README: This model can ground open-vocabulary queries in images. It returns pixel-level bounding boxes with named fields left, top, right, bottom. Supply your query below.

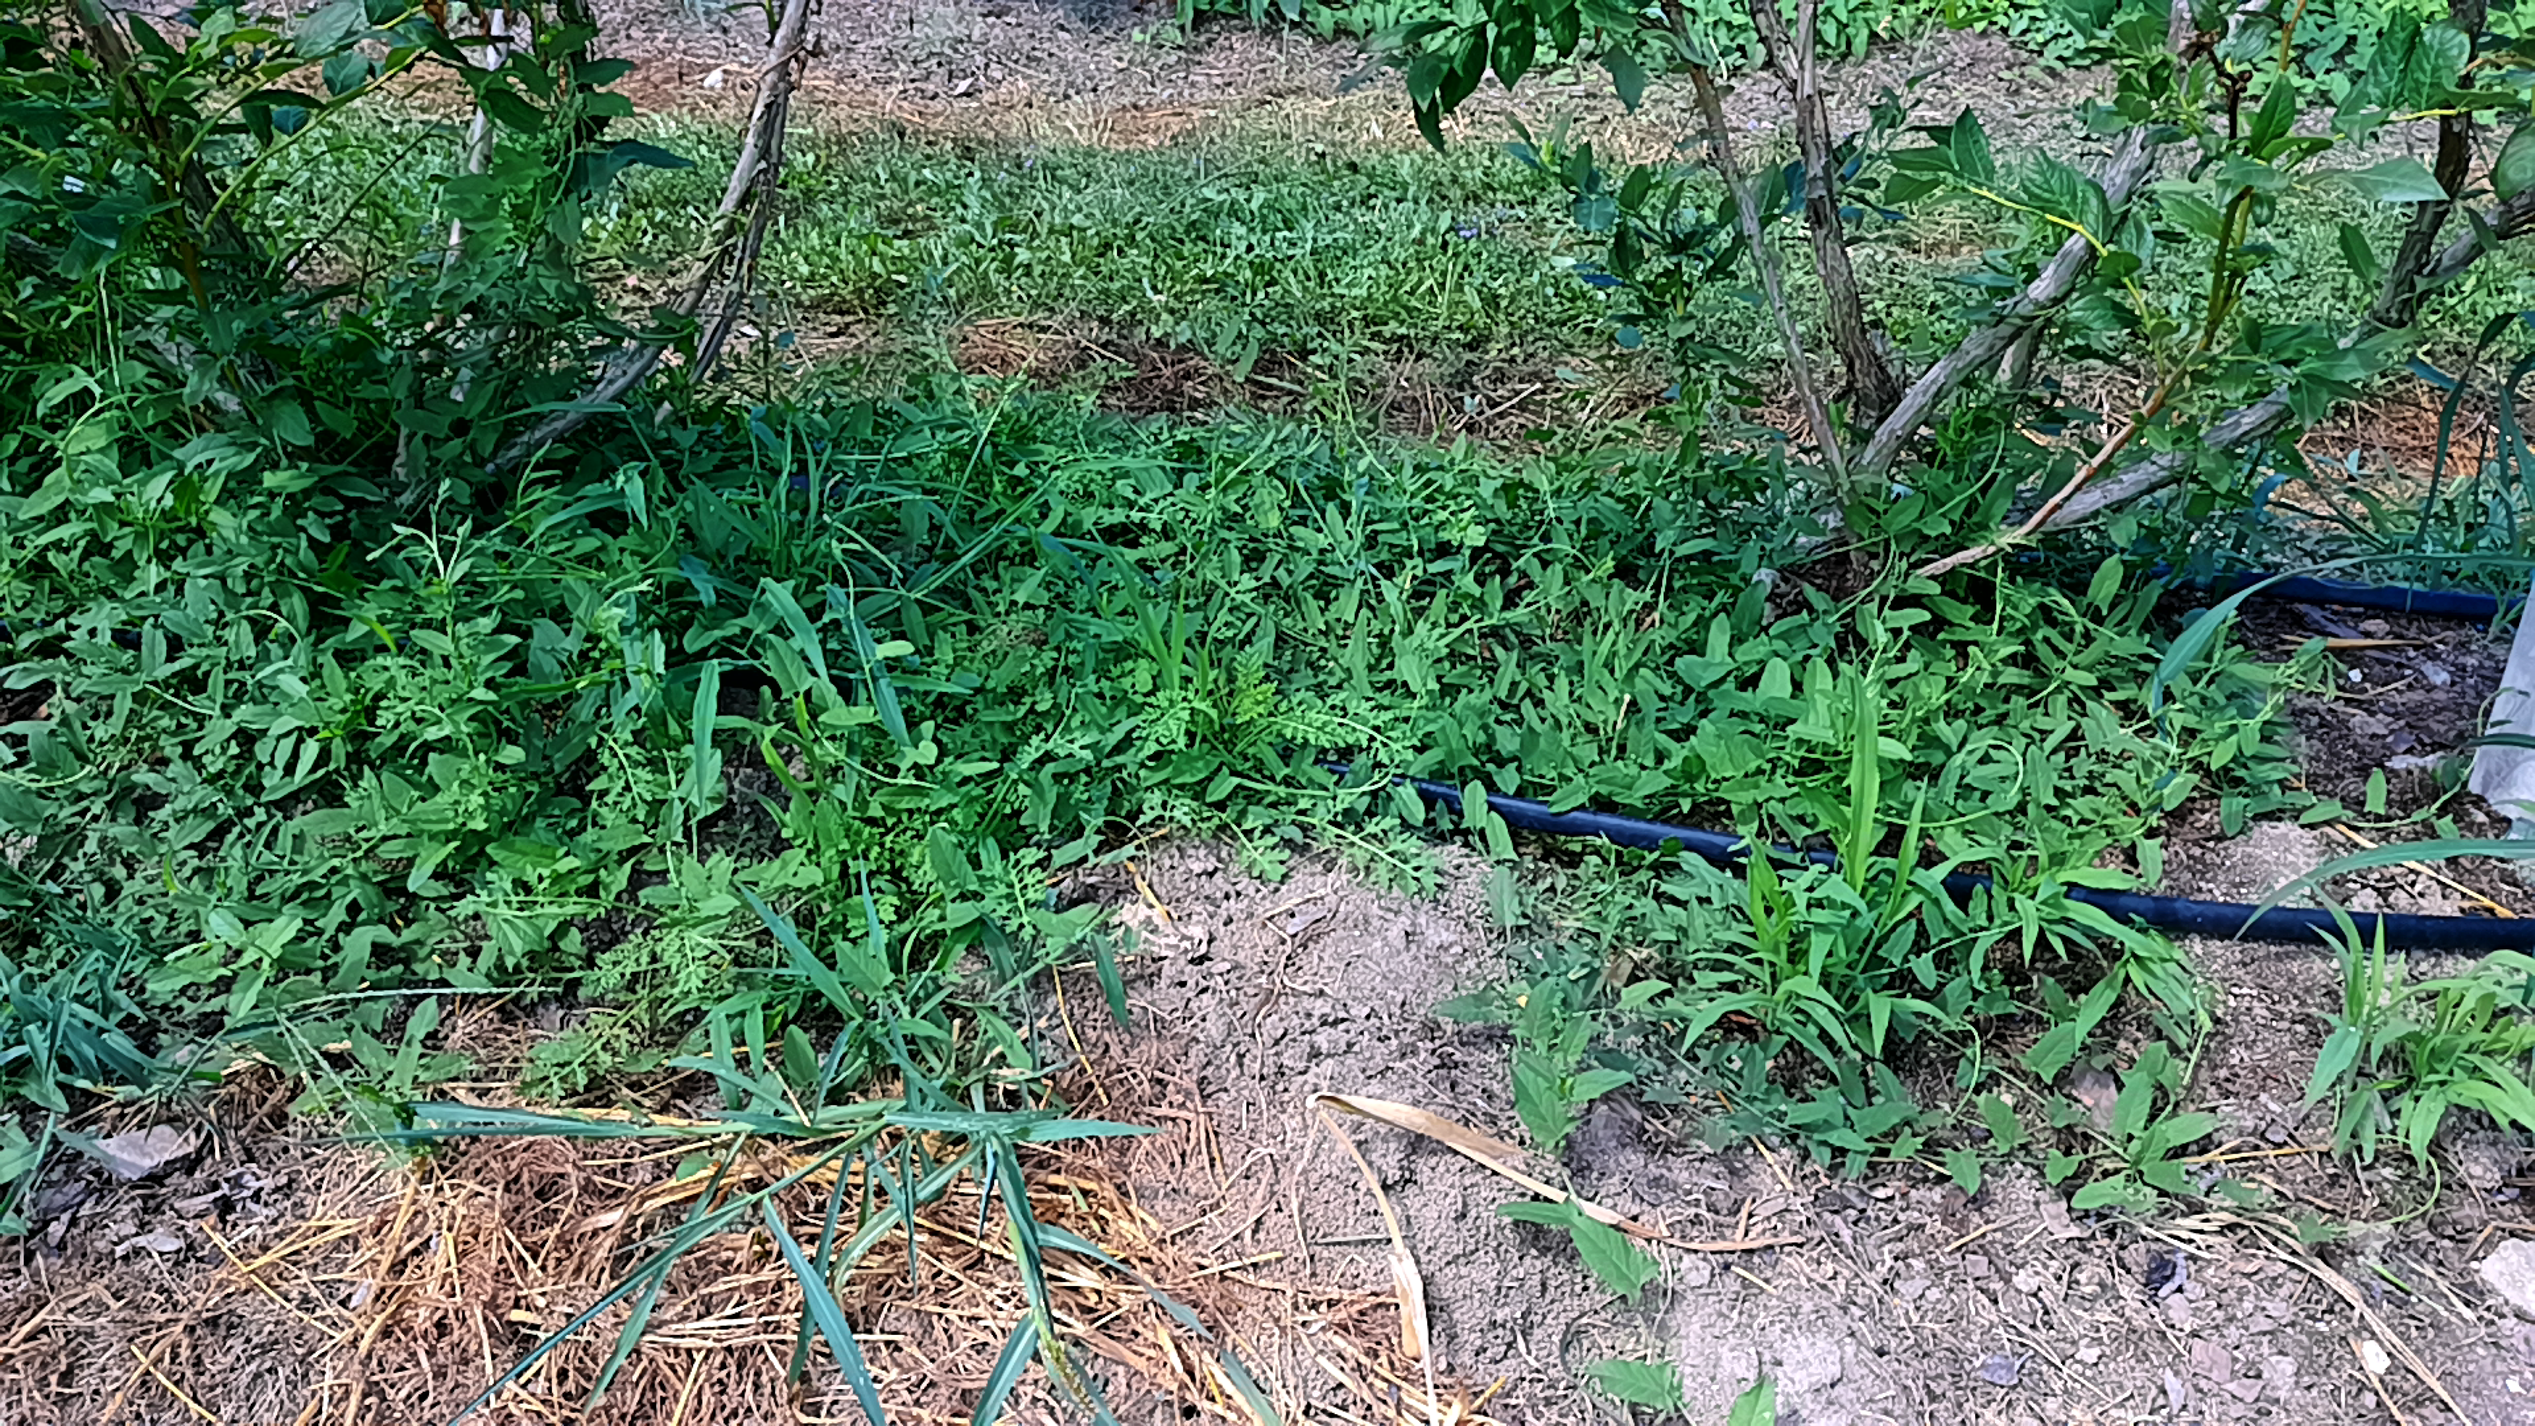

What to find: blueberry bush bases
left=24, top=100, right=853, bottom=688
left=1687, top=256, right=2247, bottom=750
